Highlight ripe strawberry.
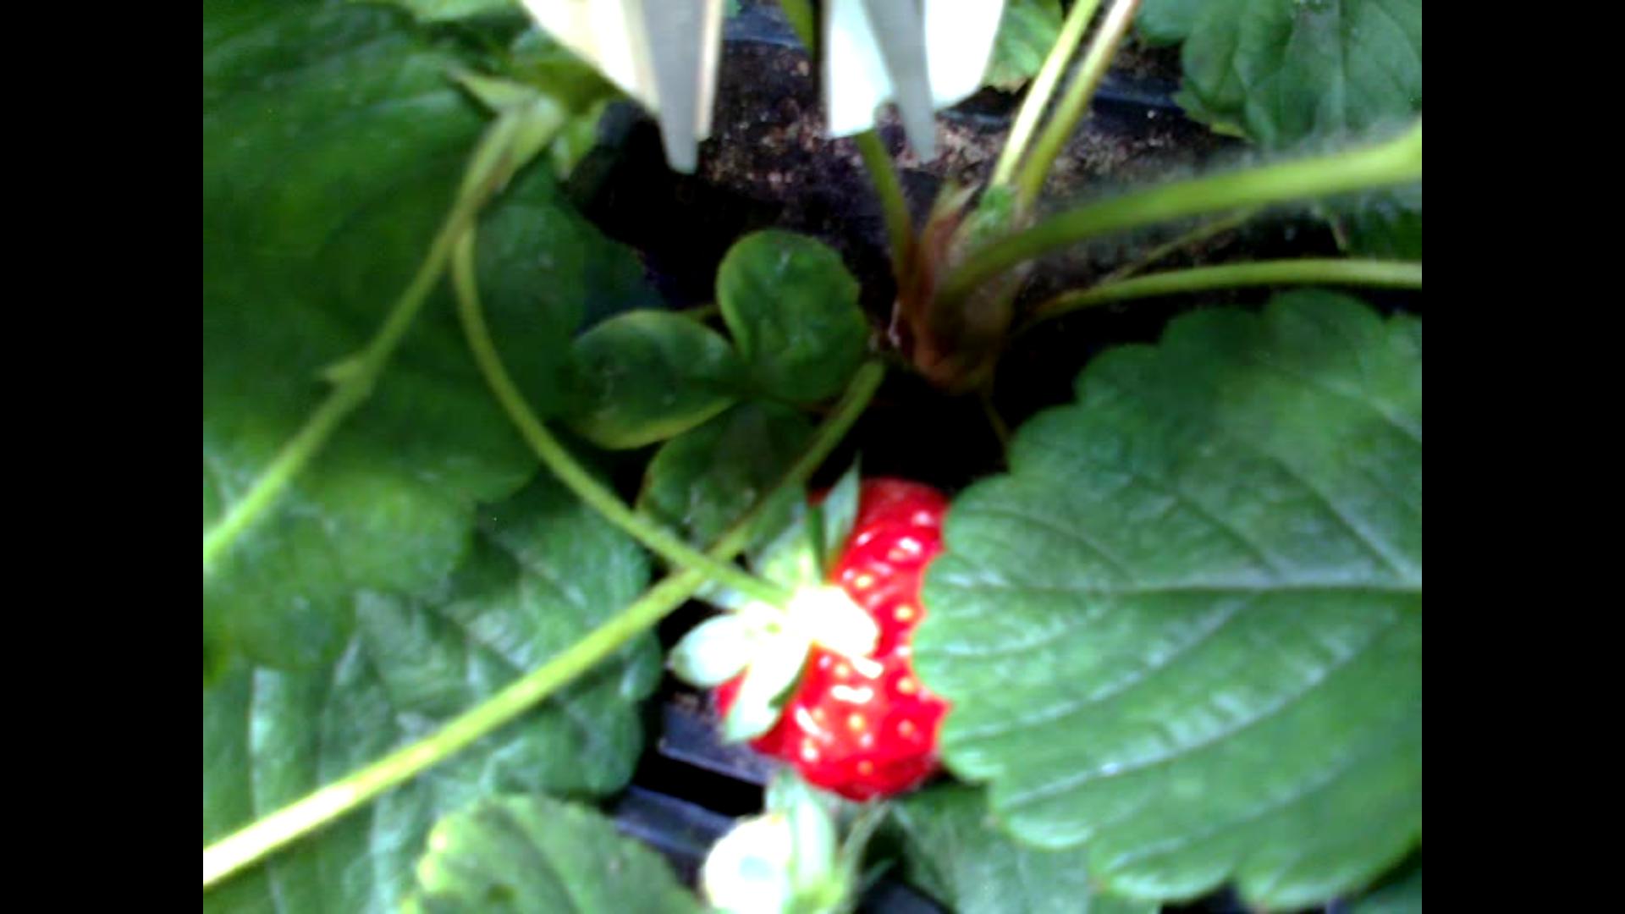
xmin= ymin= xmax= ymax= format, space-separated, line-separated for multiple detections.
xmin=617 ymin=431 xmax=1035 ymax=795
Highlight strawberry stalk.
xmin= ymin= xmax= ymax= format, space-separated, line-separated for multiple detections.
xmin=431 ymin=288 xmax=855 ymax=665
